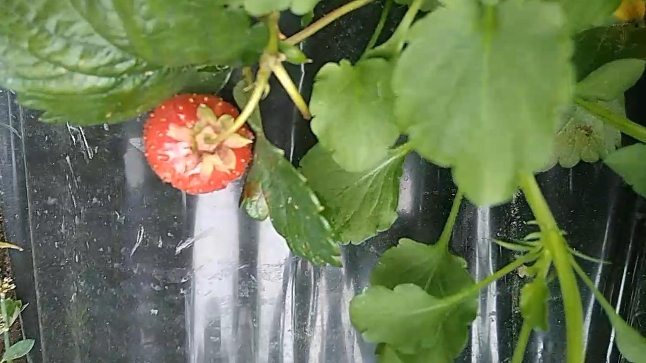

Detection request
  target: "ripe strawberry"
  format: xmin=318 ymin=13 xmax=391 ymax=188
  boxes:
xmin=135 ymin=92 xmax=262 ymax=201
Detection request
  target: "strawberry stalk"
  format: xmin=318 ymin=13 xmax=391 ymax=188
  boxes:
xmin=184 ymin=69 xmax=282 ymax=153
